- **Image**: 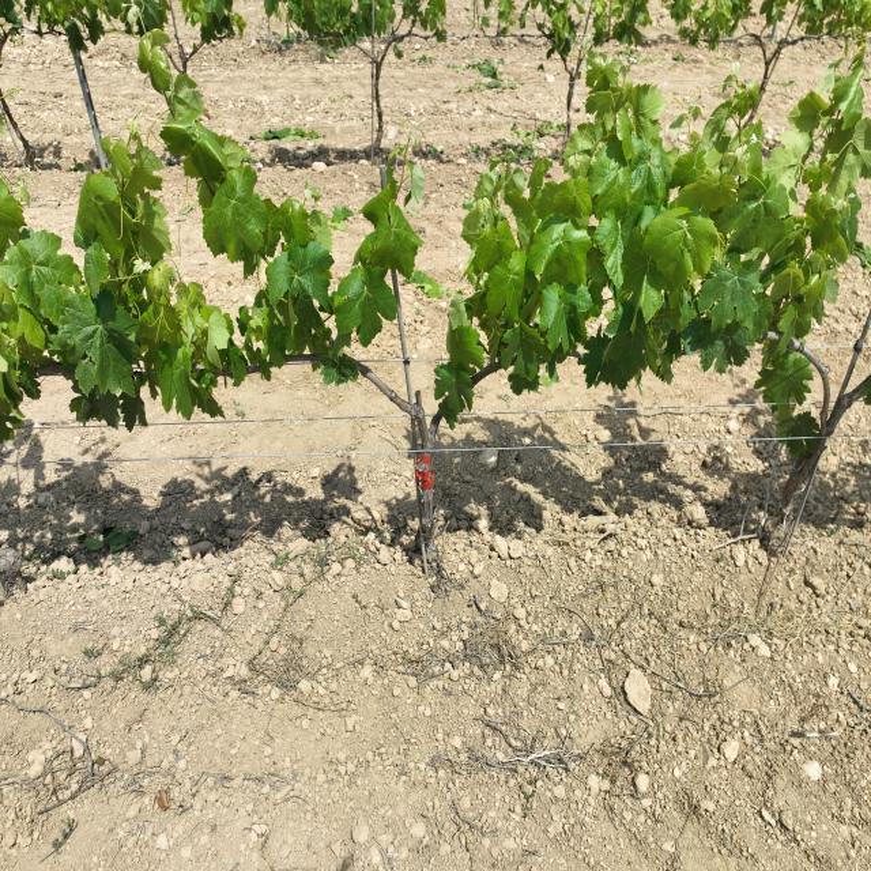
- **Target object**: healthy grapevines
[49,27,626,608]
[612,61,871,576]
